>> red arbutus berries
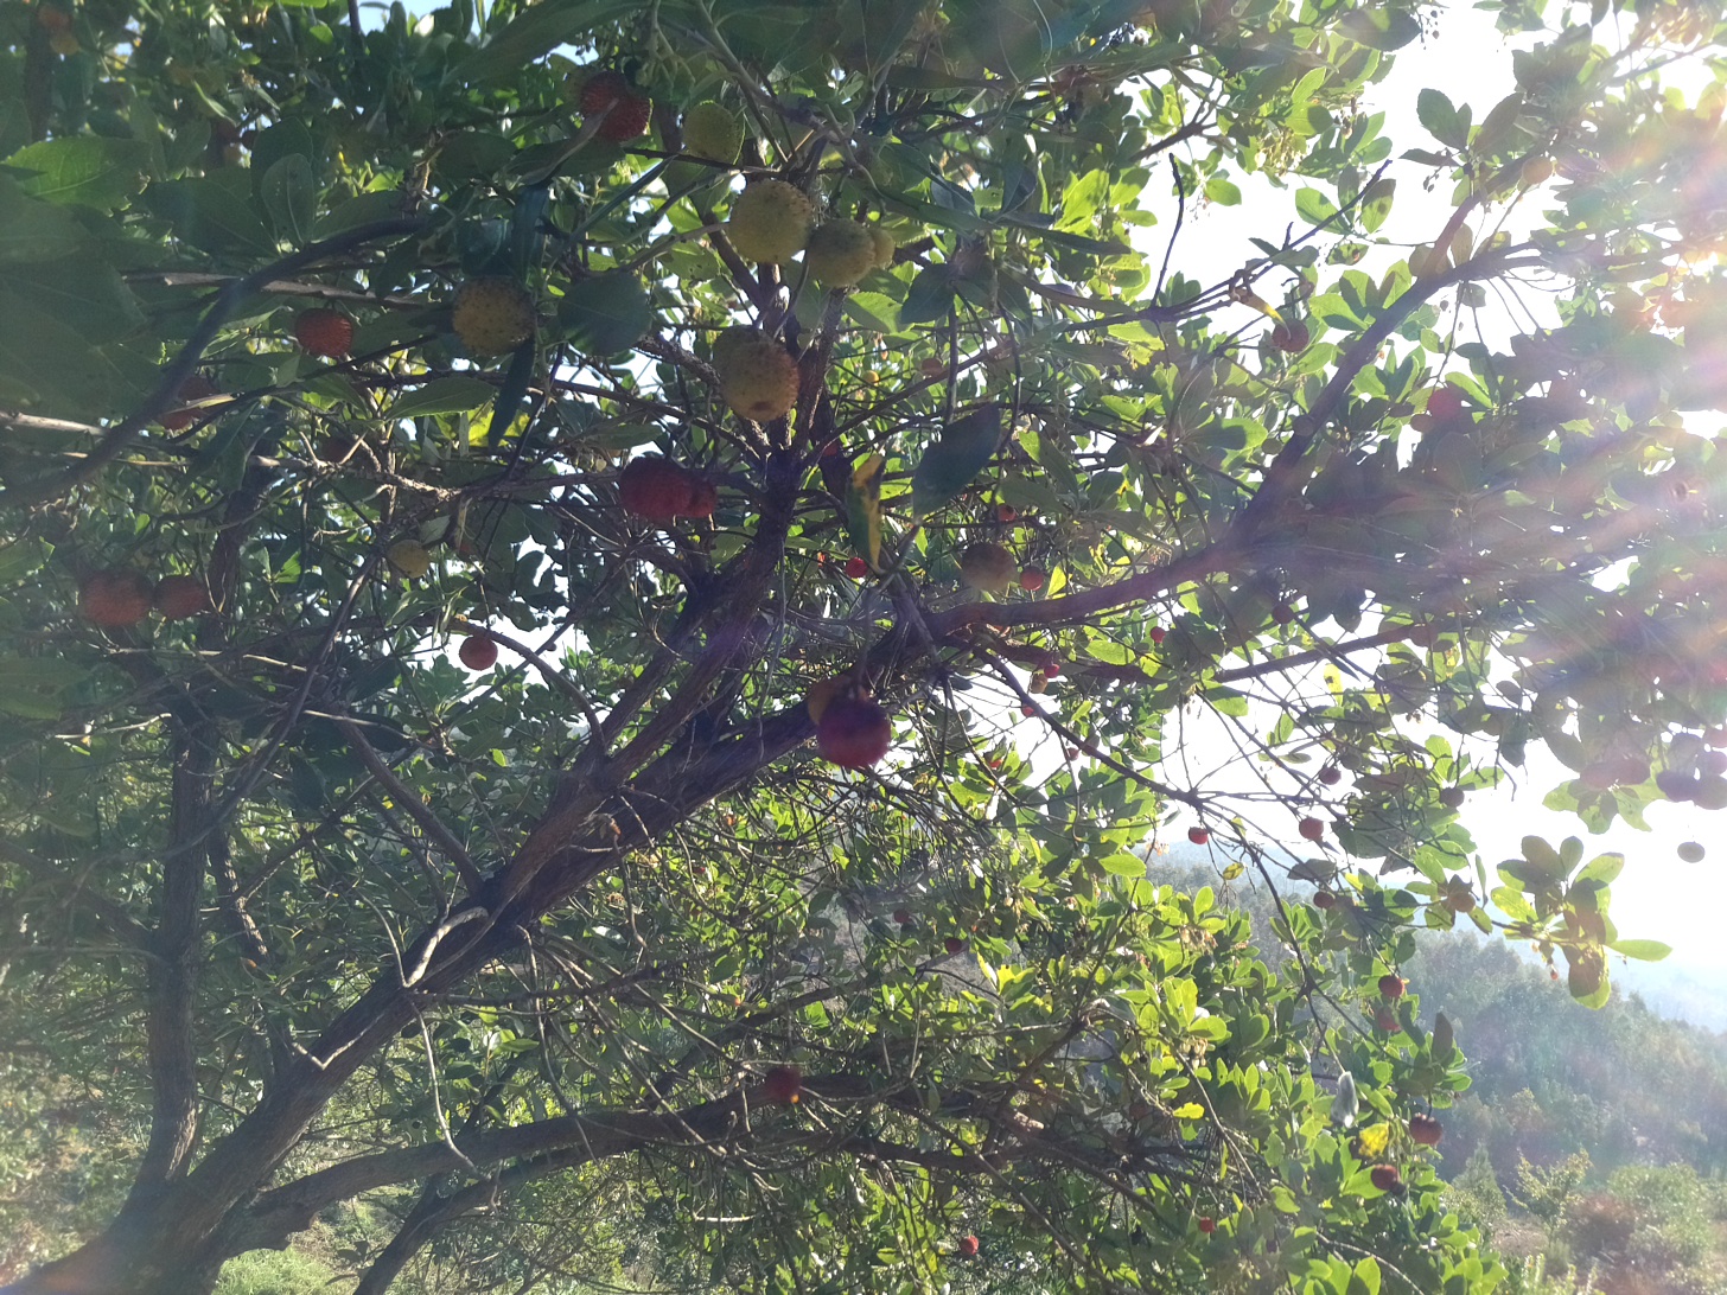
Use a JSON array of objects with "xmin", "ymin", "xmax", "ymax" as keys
[
  {"xmin": 943, "ymin": 937, "xmax": 964, "ymax": 954},
  {"xmin": 577, "ymin": 73, "xmax": 652, "ymax": 142},
  {"xmin": 1376, "ymin": 1005, "xmax": 1403, "ymax": 1031},
  {"xmin": 154, "ymin": 572, "xmax": 209, "ymax": 616},
  {"xmin": 1150, "ymin": 627, "xmax": 1167, "ymax": 642},
  {"xmin": 1298, "ymin": 816, "xmax": 1325, "ymax": 841},
  {"xmin": 984, "ymin": 752, "xmax": 1005, "ymax": 770},
  {"xmin": 1021, "ymin": 567, "xmax": 1046, "ymax": 591},
  {"xmin": 892, "ymin": 907, "xmax": 909, "ymax": 922},
  {"xmin": 679, "ymin": 472, "xmax": 715, "ymax": 520},
  {"xmin": 996, "ymin": 503, "xmax": 1016, "ymax": 524},
  {"xmin": 292, "ymin": 304, "xmax": 358, "ymax": 358},
  {"xmin": 79, "ymin": 564, "xmax": 152, "ymax": 625},
  {"xmin": 921, "ymin": 357, "xmax": 944, "ymax": 378},
  {"xmin": 959, "ymin": 1236, "xmax": 979, "ymax": 1254},
  {"xmin": 1271, "ymin": 605, "xmax": 1294, "ymax": 624},
  {"xmin": 1270, "ymin": 317, "xmax": 1311, "ymax": 354},
  {"xmin": 763, "ymin": 1064, "xmax": 804, "ymax": 1106},
  {"xmin": 1371, "ymin": 1162, "xmax": 1399, "ymax": 1188},
  {"xmin": 618, "ymin": 457, "xmax": 694, "ymax": 523},
  {"xmin": 845, "ymin": 554, "xmax": 870, "ymax": 577},
  {"xmin": 459, "ymin": 629, "xmax": 498, "ymax": 668},
  {"xmin": 157, "ymin": 402, "xmax": 197, "ymax": 430},
  {"xmin": 1189, "ymin": 825, "xmax": 1208, "ymax": 845},
  {"xmin": 1311, "ymin": 889, "xmax": 1336, "ymax": 908},
  {"xmin": 1409, "ymin": 1115, "xmax": 1442, "ymax": 1146},
  {"xmin": 1376, "ymin": 975, "xmax": 1405, "ymax": 997},
  {"xmin": 1424, "ymin": 384, "xmax": 1466, "ymax": 418},
  {"xmin": 320, "ymin": 434, "xmax": 351, "ymax": 463},
  {"xmin": 1042, "ymin": 664, "xmax": 1060, "ymax": 679},
  {"xmin": 818, "ymin": 691, "xmax": 890, "ymax": 771}
]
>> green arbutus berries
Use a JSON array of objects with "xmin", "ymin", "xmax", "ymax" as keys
[
  {"xmin": 722, "ymin": 181, "xmax": 814, "ymax": 267},
  {"xmin": 808, "ymin": 218, "xmax": 888, "ymax": 292},
  {"xmin": 677, "ymin": 95, "xmax": 746, "ymax": 163}
]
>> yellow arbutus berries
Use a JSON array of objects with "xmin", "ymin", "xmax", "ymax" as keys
[
  {"xmin": 392, "ymin": 537, "xmax": 431, "ymax": 573},
  {"xmin": 962, "ymin": 542, "xmax": 1014, "ymax": 590},
  {"xmin": 860, "ymin": 370, "xmax": 879, "ymax": 383},
  {"xmin": 721, "ymin": 341, "xmax": 802, "ymax": 422},
  {"xmin": 705, "ymin": 322, "xmax": 770, "ymax": 372},
  {"xmin": 449, "ymin": 275, "xmax": 536, "ymax": 353},
  {"xmin": 808, "ymin": 671, "xmax": 869, "ymax": 725}
]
